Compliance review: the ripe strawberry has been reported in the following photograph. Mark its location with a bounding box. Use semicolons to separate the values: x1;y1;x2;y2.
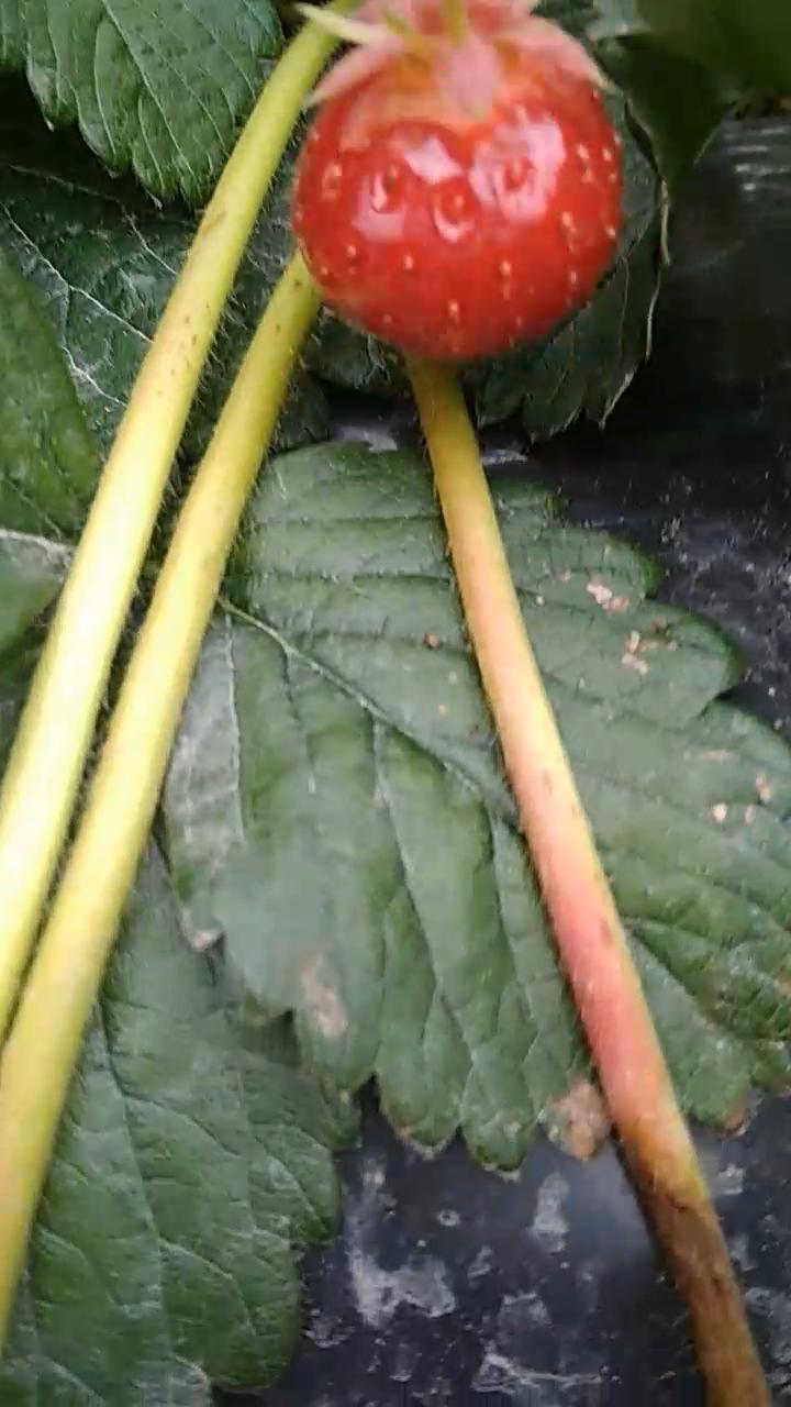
299;57;620;370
